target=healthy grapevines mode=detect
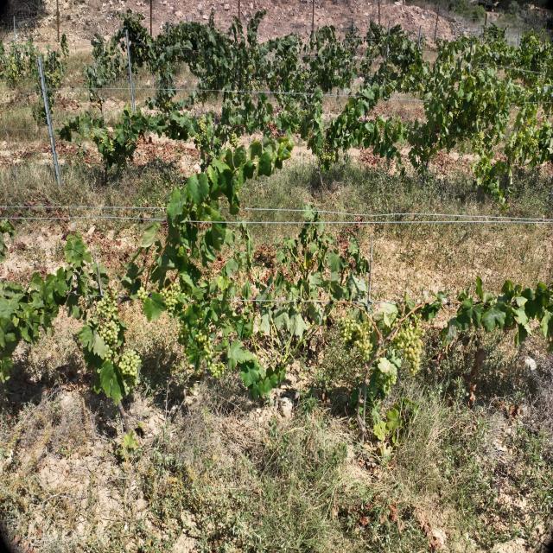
[0,206,214,470]
[220,212,553,466]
